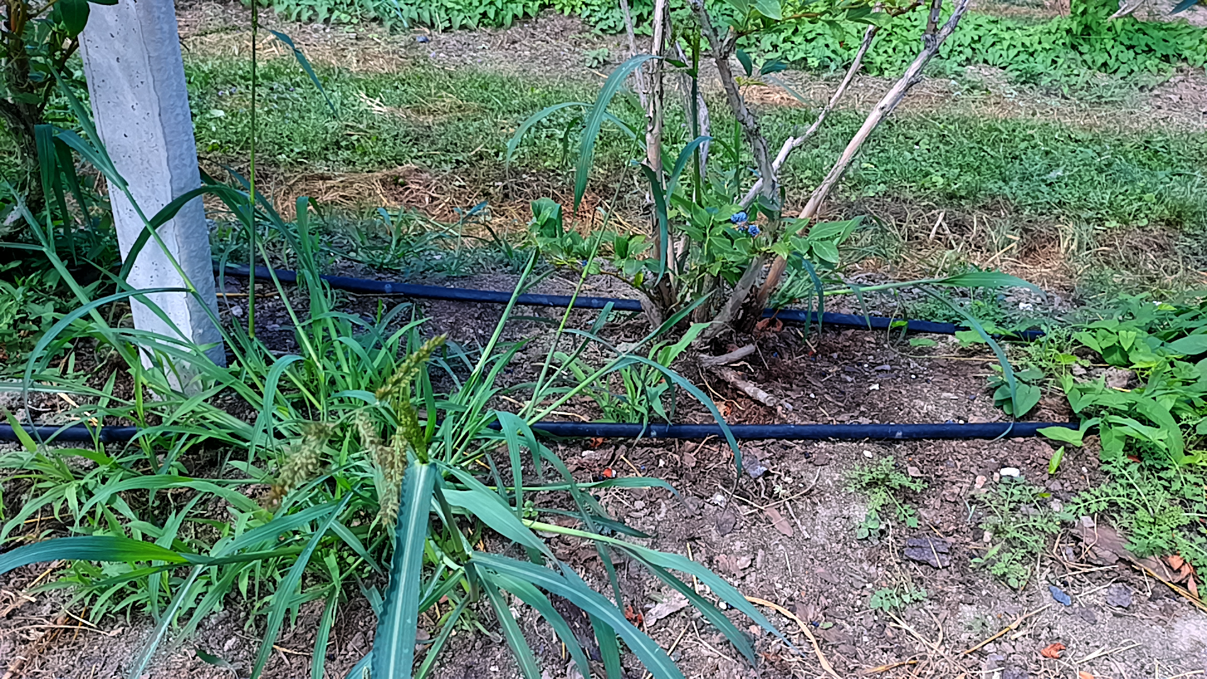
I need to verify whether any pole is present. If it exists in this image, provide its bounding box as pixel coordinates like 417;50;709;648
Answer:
85;0;241;397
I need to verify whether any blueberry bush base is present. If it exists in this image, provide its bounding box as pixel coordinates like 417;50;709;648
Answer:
597;180;848;419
